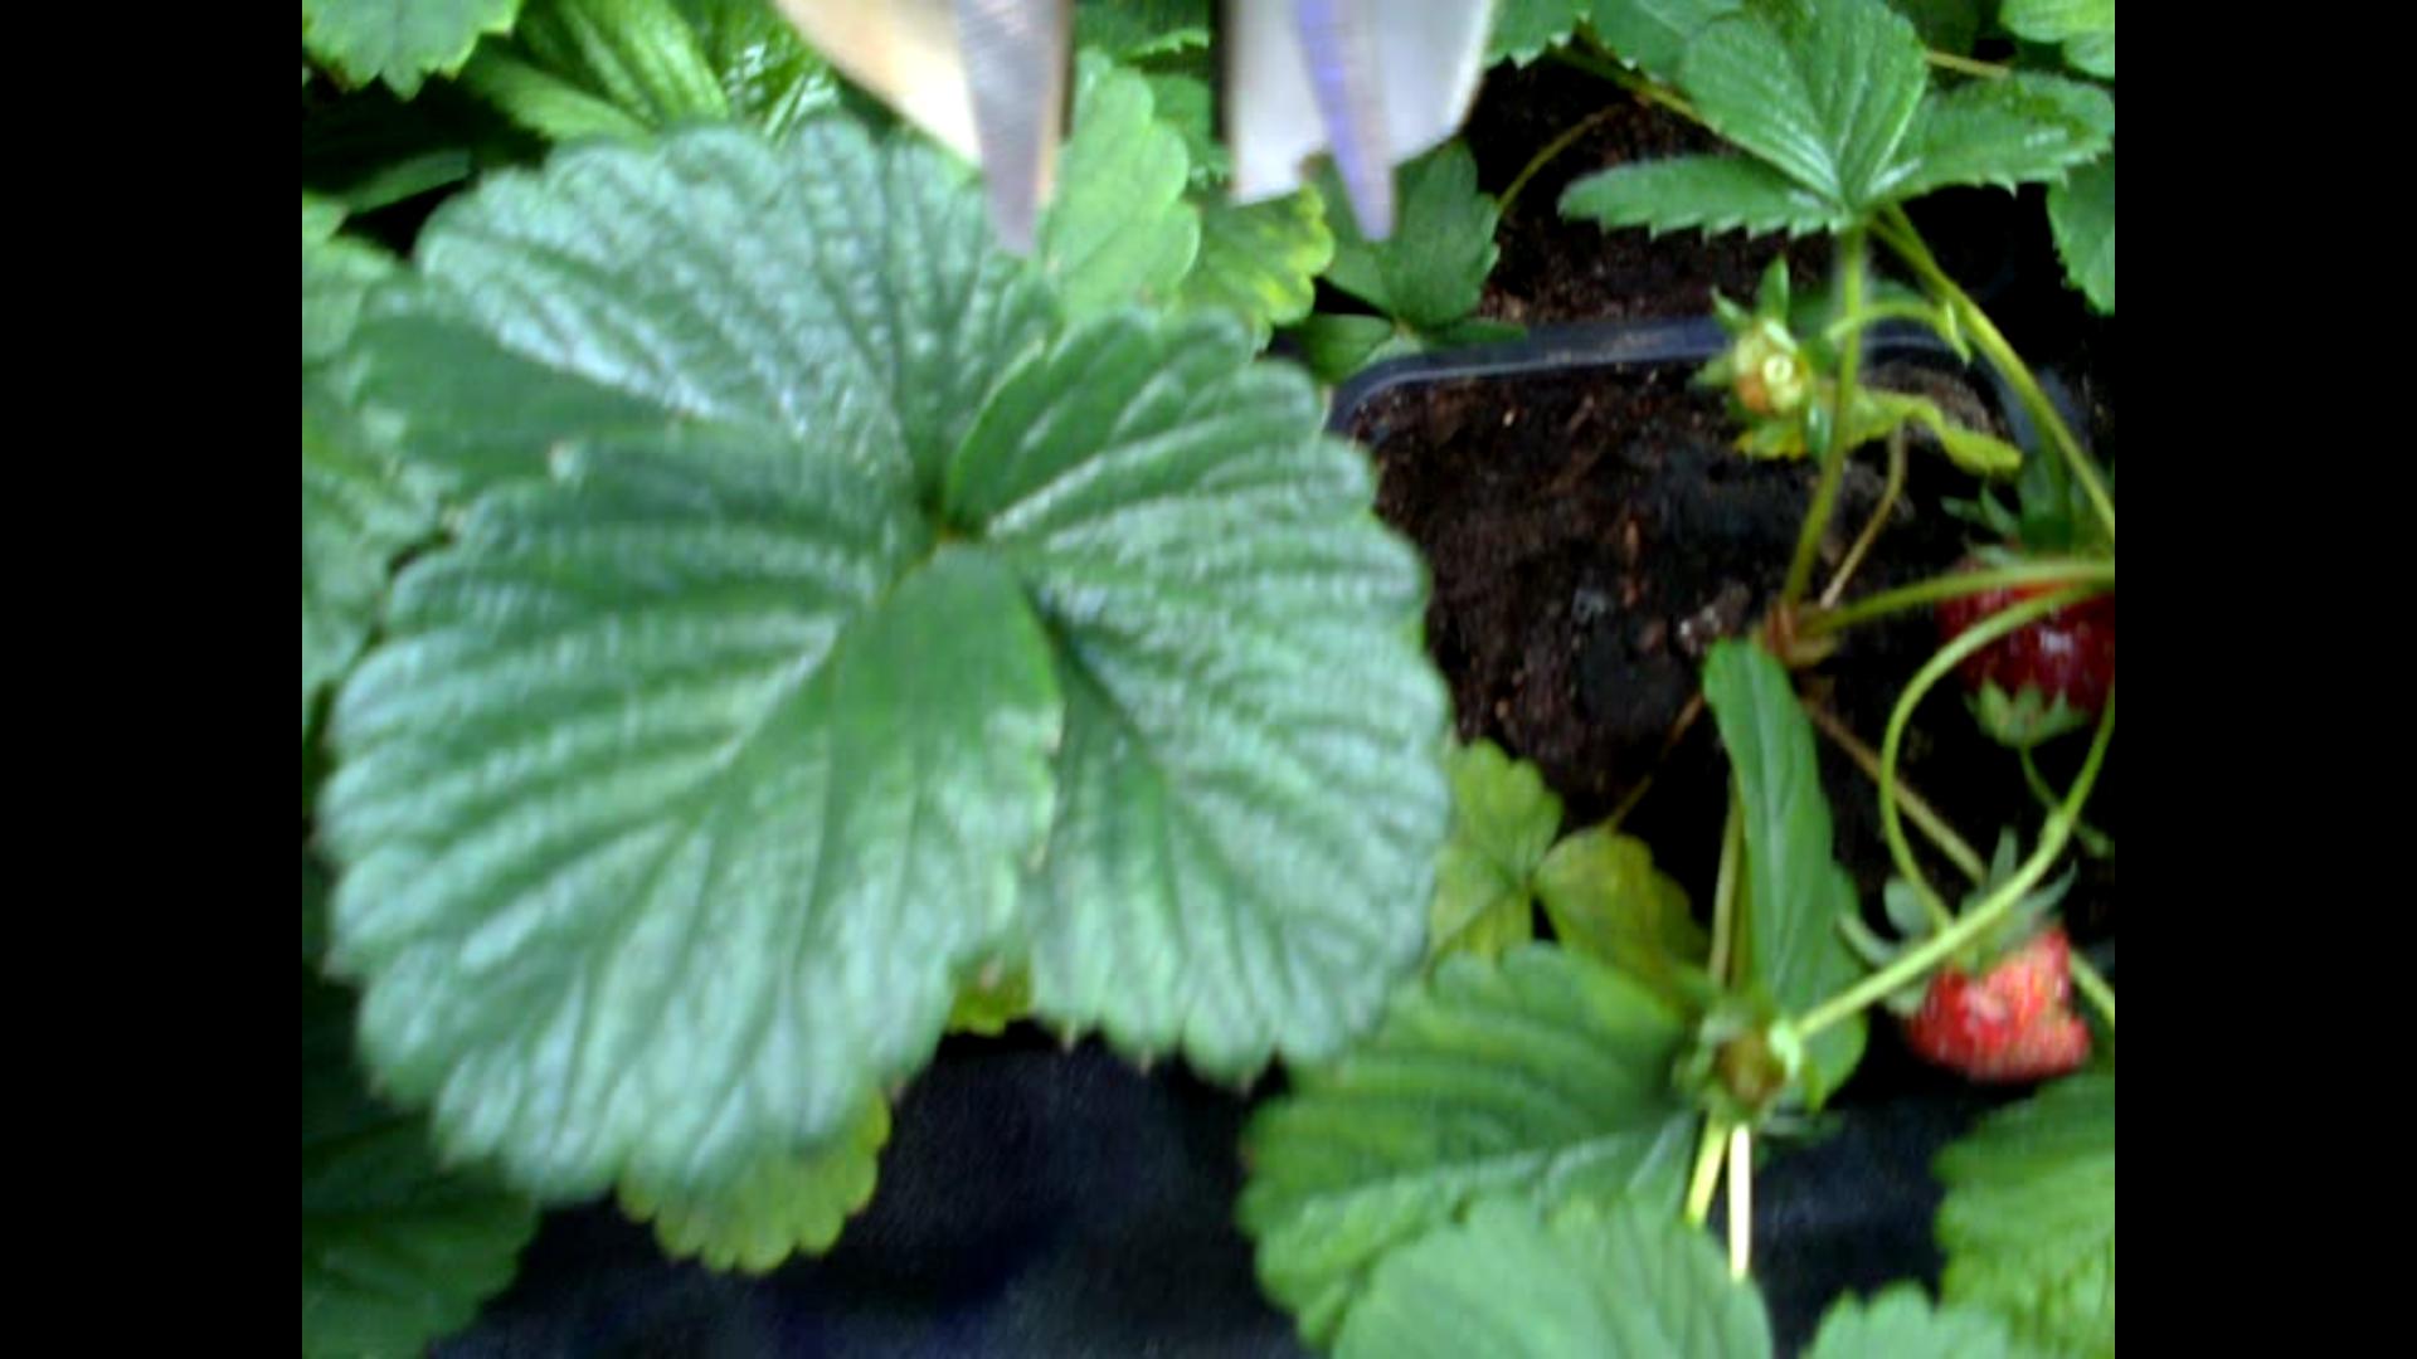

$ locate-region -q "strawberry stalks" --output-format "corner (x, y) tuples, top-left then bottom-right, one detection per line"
(1868, 747), (1932, 1009)
(1788, 293), (1932, 362)
(1981, 696), (2107, 858)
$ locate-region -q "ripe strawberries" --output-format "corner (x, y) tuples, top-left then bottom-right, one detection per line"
(1923, 507), (2112, 725)
(1851, 912), (2119, 1113)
